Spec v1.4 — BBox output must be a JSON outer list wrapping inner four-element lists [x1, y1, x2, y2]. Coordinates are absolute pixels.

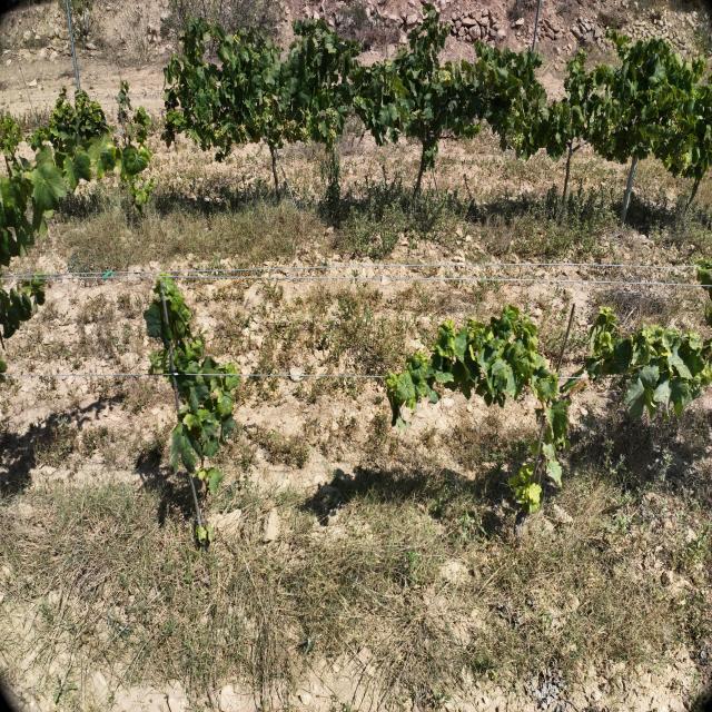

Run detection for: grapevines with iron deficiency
[[376, 299, 712, 557], [140, 259, 247, 565]]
